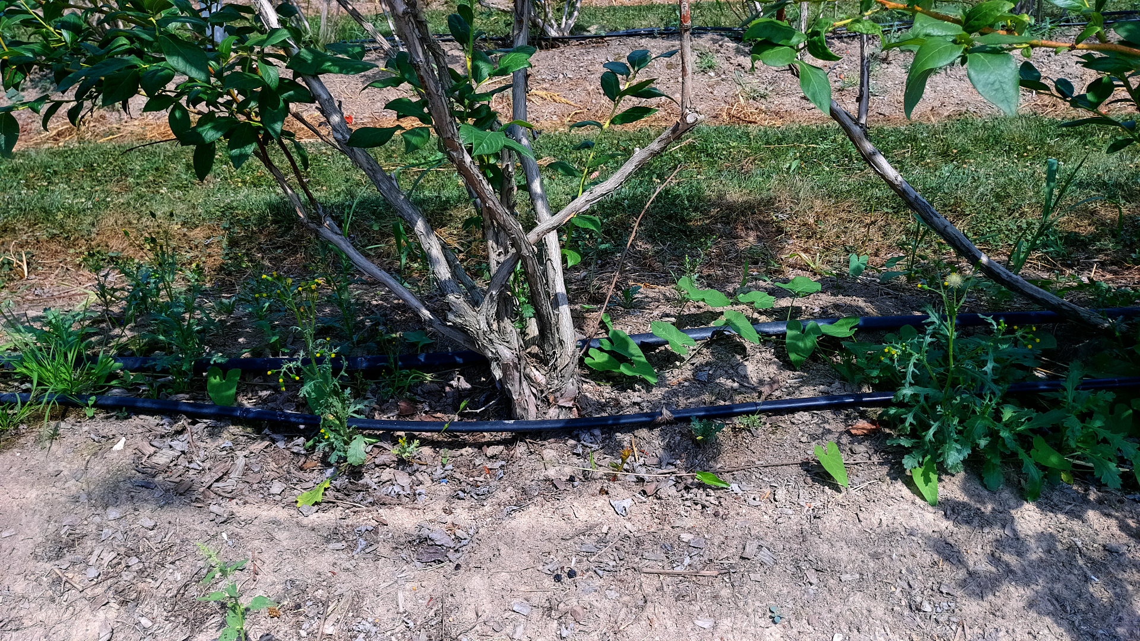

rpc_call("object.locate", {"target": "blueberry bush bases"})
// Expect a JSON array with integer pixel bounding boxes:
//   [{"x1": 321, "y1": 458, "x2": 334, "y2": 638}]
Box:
[
  {"x1": 516, "y1": 1, "x2": 590, "y2": 50},
  {"x1": 347, "y1": 179, "x2": 613, "y2": 452}
]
